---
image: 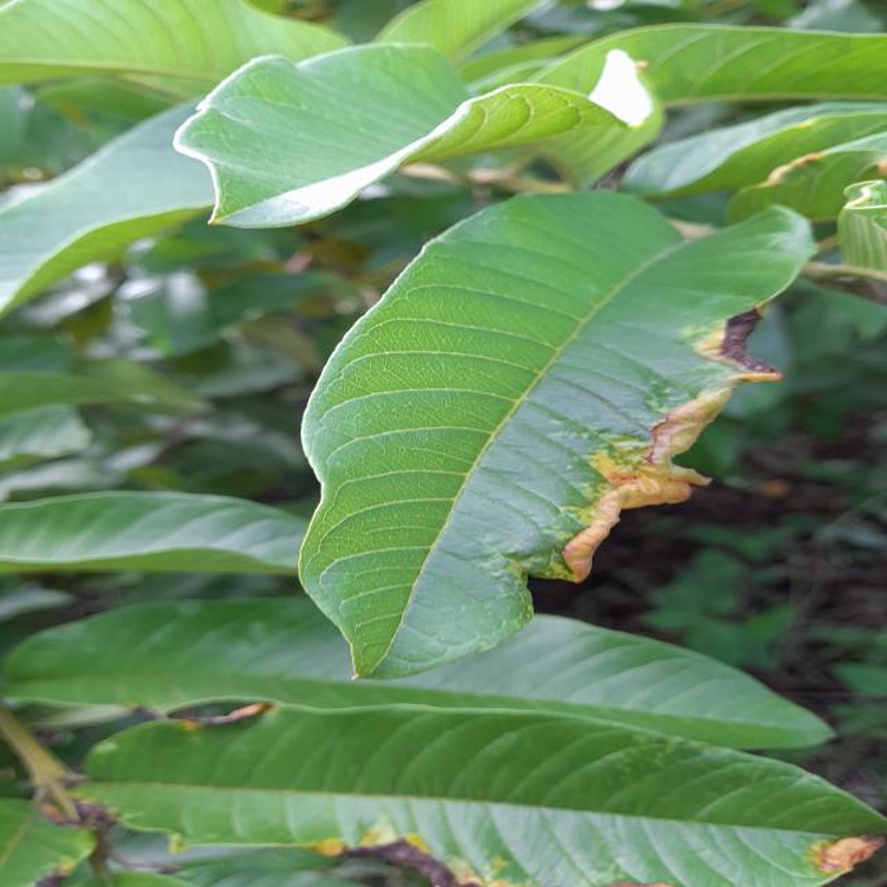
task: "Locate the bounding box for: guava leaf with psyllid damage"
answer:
[258,179,836,696]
